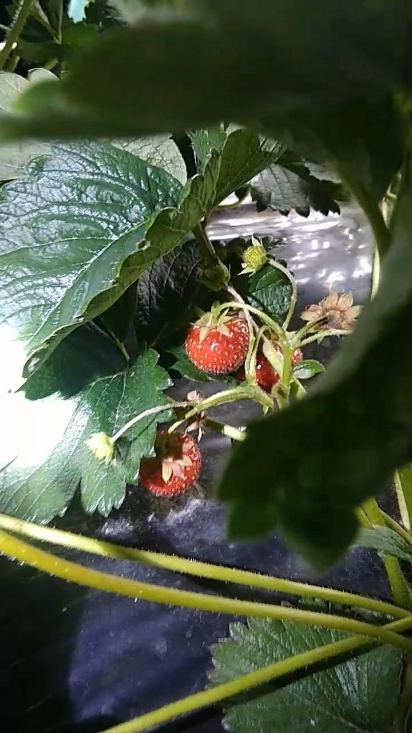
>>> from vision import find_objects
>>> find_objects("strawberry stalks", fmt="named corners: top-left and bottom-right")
top-left (157, 387), bottom-right (196, 461)
top-left (205, 297), bottom-right (281, 322)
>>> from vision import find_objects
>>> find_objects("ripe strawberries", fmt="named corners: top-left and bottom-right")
top-left (243, 331), bottom-right (315, 400)
top-left (188, 314), bottom-right (258, 372)
top-left (137, 435), bottom-right (203, 495)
